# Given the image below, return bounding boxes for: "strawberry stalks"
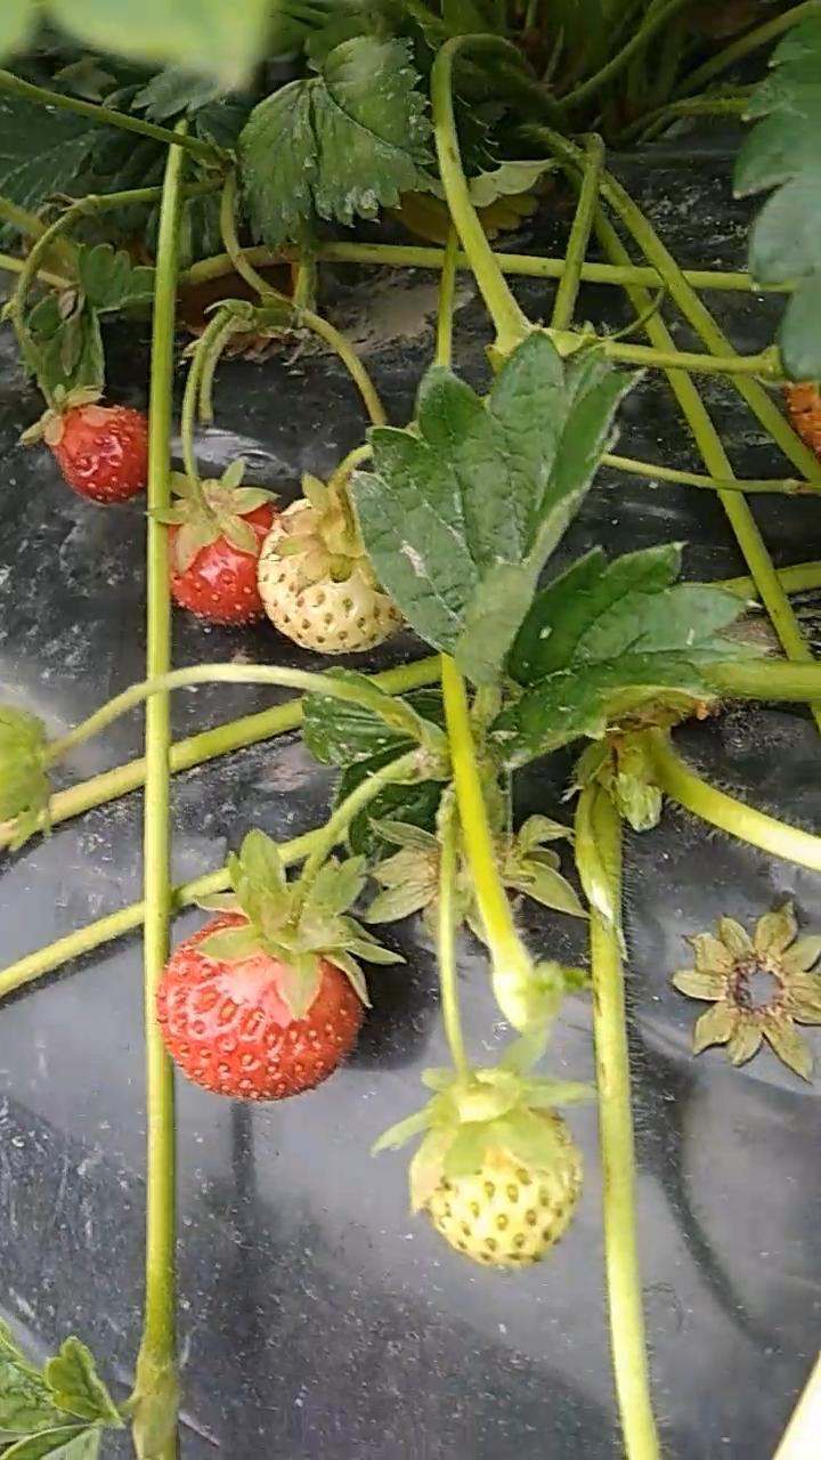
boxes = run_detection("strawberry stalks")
[253,768,379,970]
[21,348,87,450]
[174,322,250,551]
[287,423,377,544]
[433,980,509,1116]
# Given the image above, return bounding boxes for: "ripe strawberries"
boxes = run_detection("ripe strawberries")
[52,403,148,504]
[148,485,266,627]
[154,919,358,1109]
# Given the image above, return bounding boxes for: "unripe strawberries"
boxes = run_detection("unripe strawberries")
[418,1099,583,1275]
[261,504,397,660]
